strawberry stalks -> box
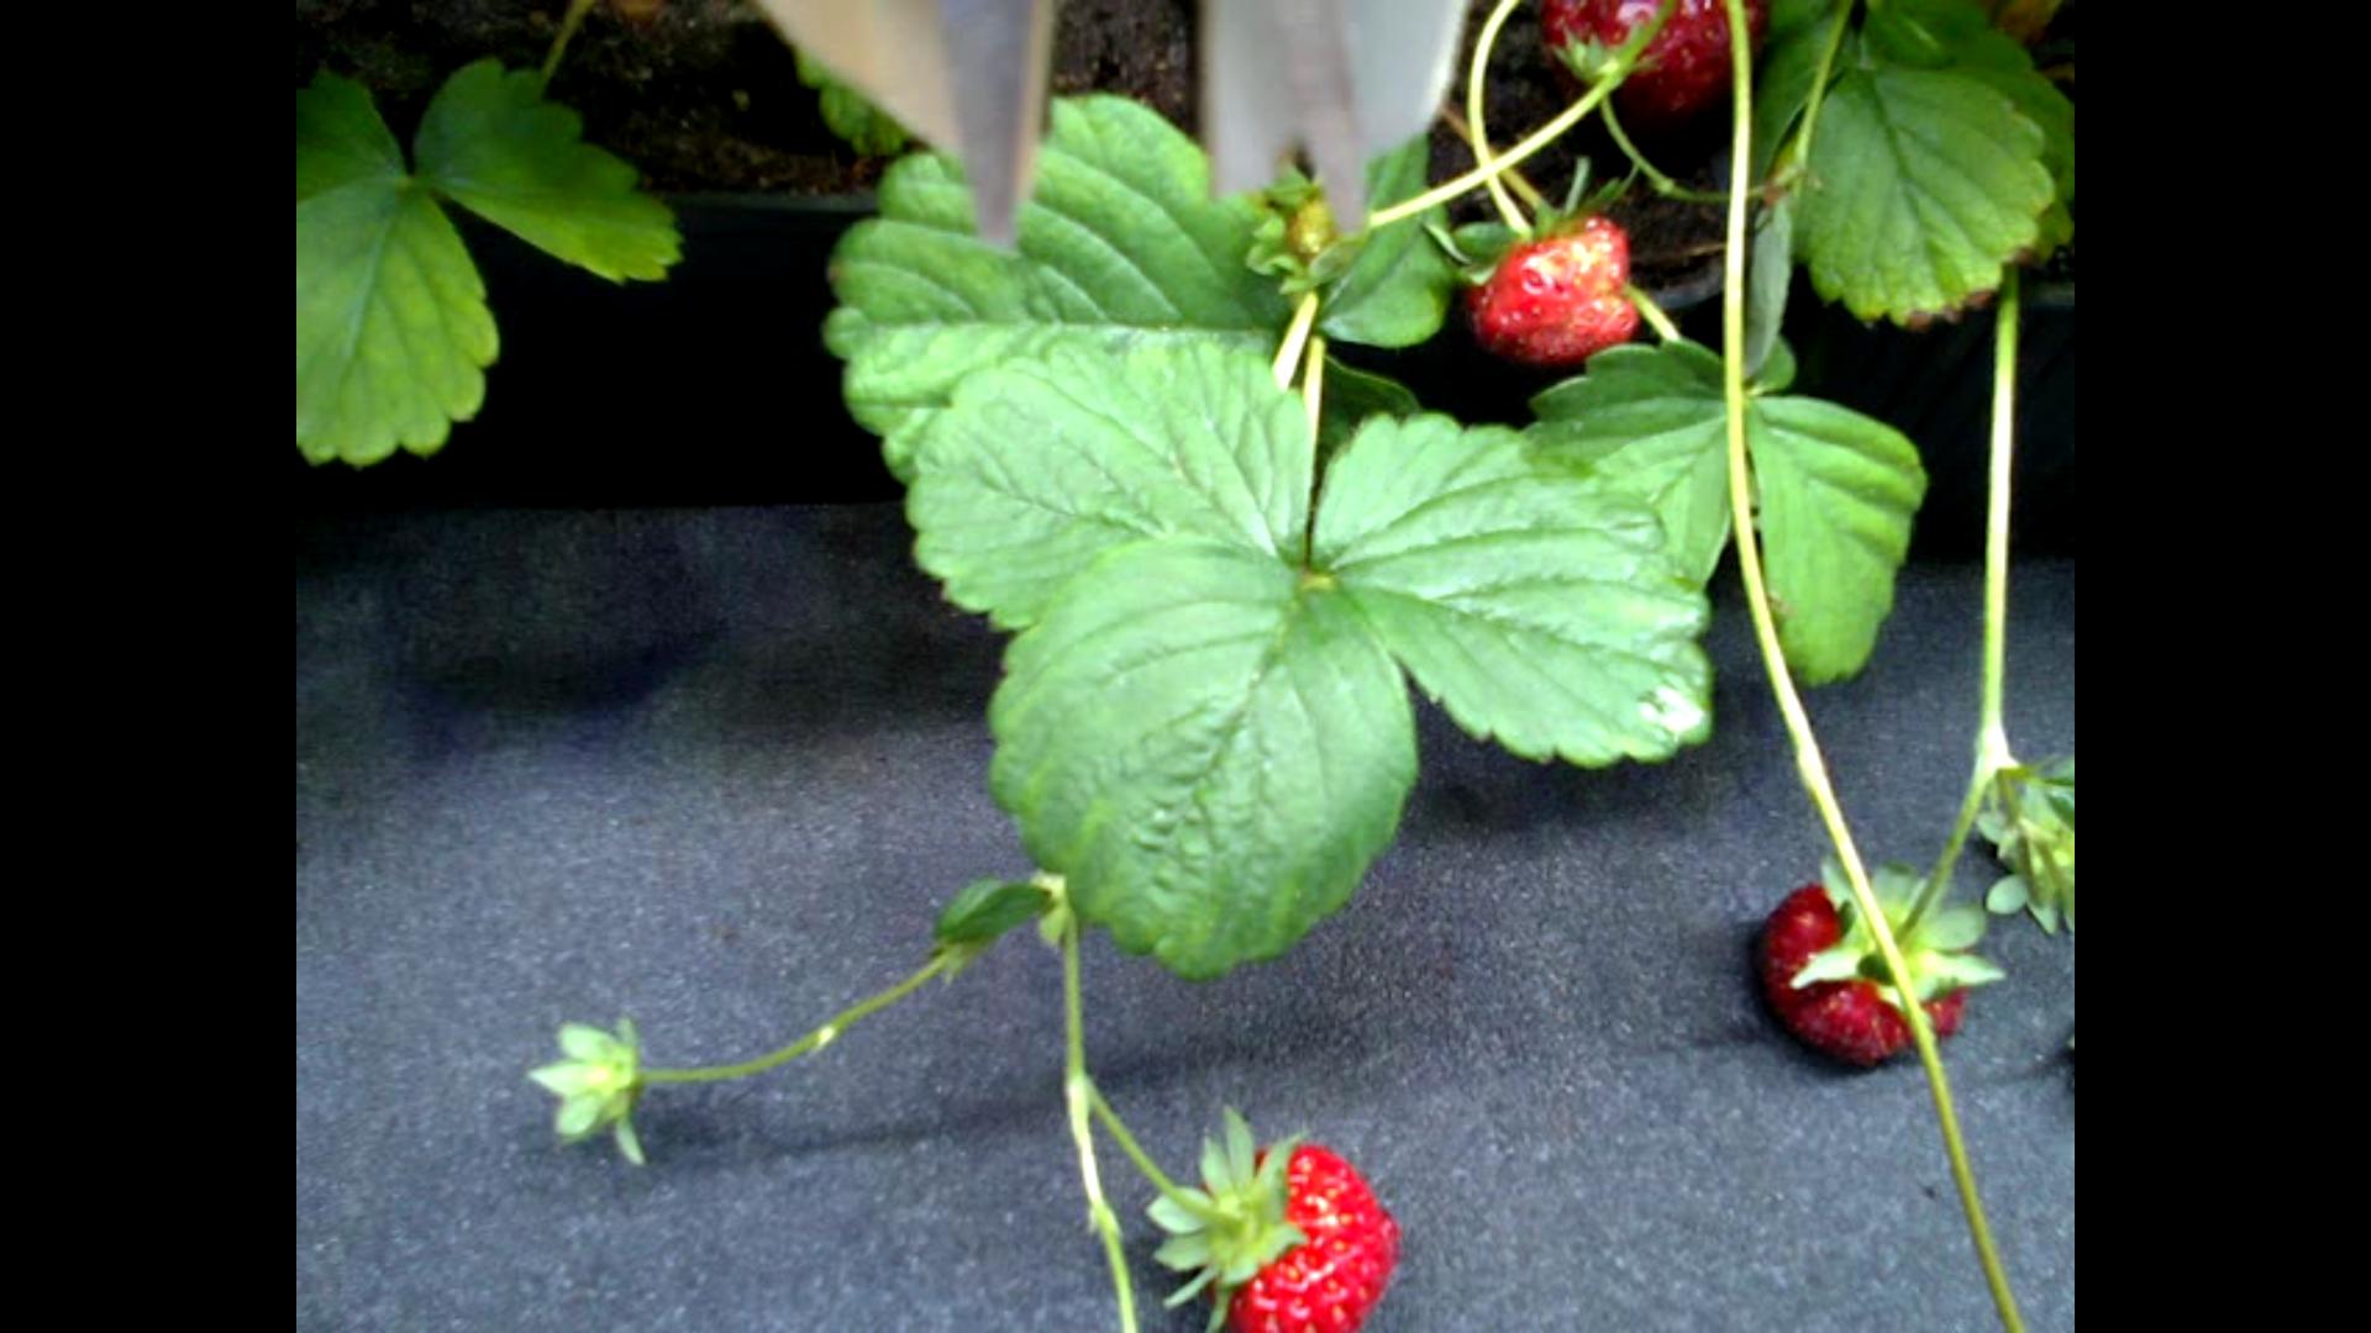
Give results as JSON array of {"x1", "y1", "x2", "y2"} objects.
[
  {"x1": 1139, "y1": 1136, "x2": 1272, "y2": 1242},
  {"x1": 1880, "y1": 822, "x2": 1952, "y2": 977},
  {"x1": 1468, "y1": 142, "x2": 1562, "y2": 277},
  {"x1": 1564, "y1": 44, "x2": 1653, "y2": 169}
]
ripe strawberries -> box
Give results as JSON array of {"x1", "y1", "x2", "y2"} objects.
[
  {"x1": 1763, "y1": 863, "x2": 1976, "y2": 1078},
  {"x1": 1539, "y1": 2, "x2": 1786, "y2": 110},
  {"x1": 1444, "y1": 206, "x2": 1653, "y2": 370},
  {"x1": 1172, "y1": 1142, "x2": 1422, "y2": 1326}
]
